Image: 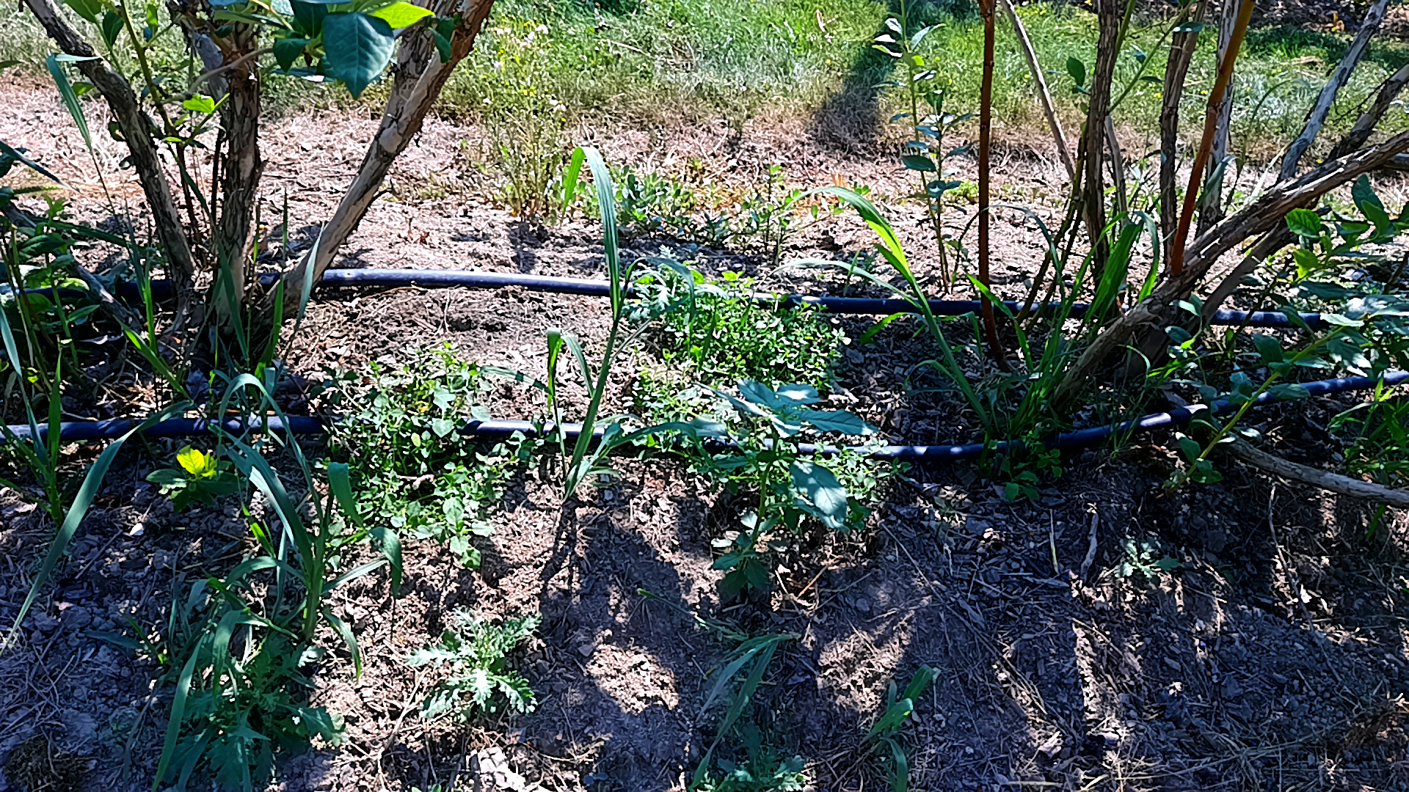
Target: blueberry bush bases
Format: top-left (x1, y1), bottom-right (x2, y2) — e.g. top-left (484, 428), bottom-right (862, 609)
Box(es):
top-left (35, 184), bottom-right (429, 499)
top-left (883, 196), bottom-right (1316, 541)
